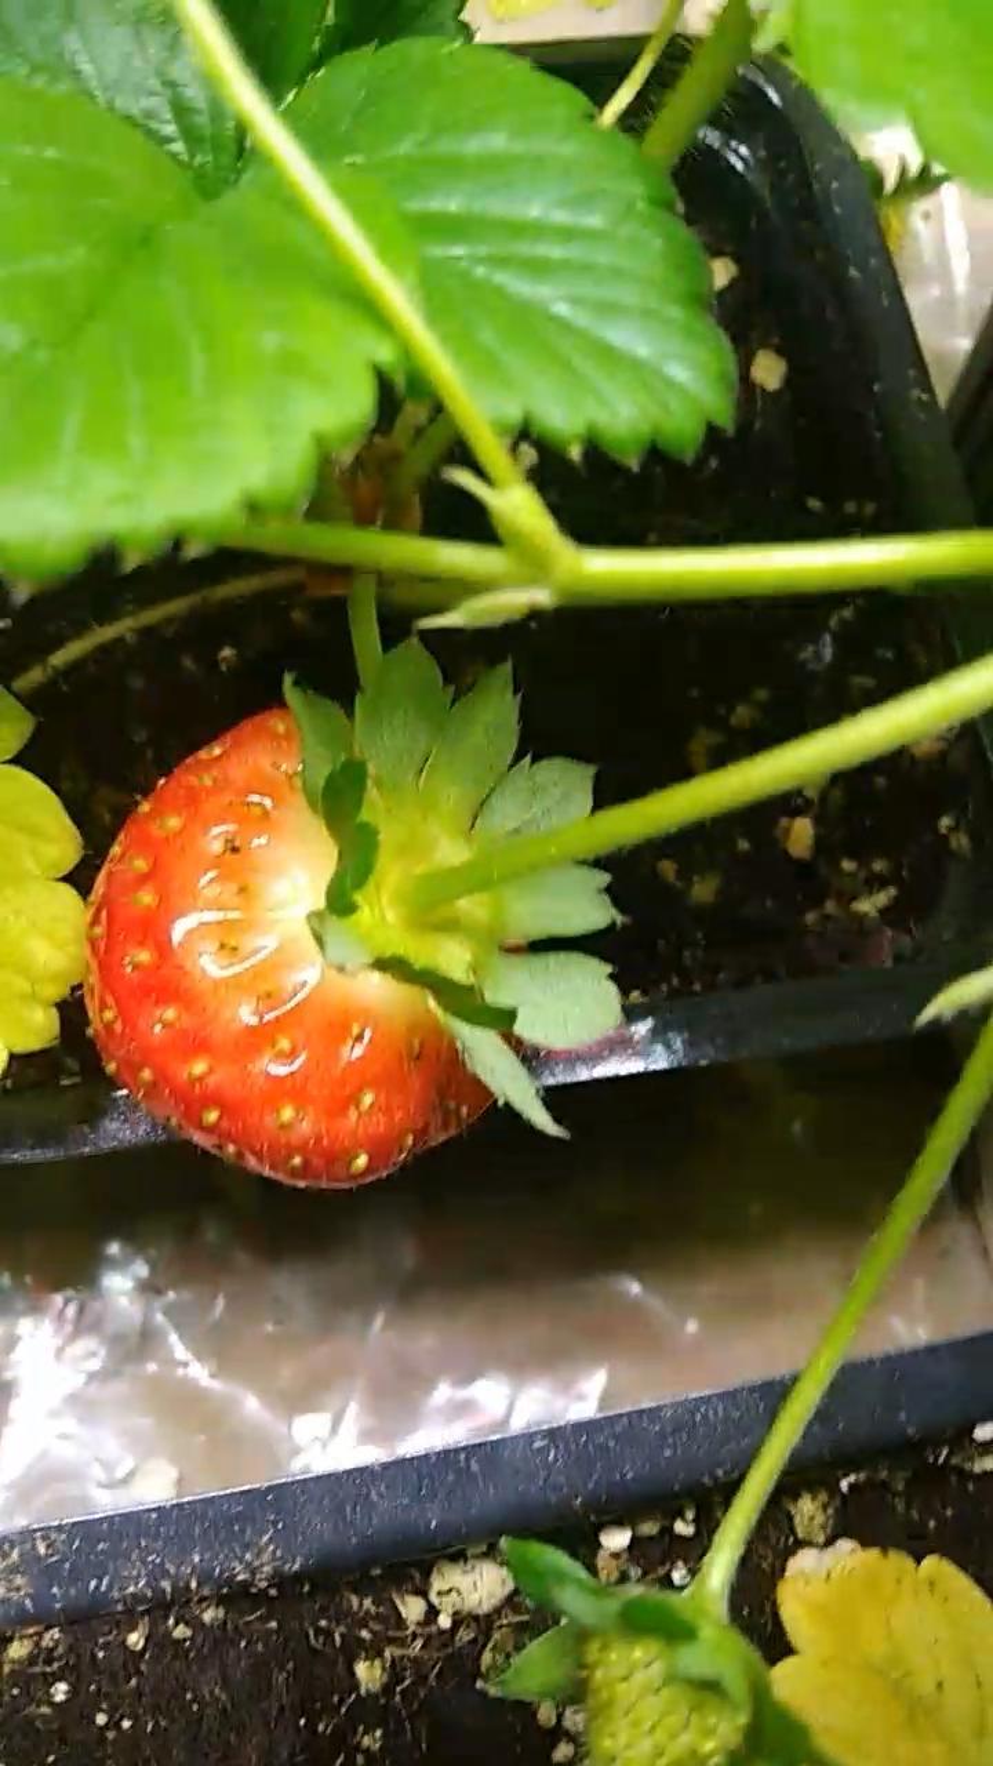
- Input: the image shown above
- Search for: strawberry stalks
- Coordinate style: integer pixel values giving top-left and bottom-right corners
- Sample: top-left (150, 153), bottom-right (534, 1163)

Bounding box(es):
top-left (248, 626), bottom-right (988, 1004)
top-left (688, 1245), bottom-right (907, 1608)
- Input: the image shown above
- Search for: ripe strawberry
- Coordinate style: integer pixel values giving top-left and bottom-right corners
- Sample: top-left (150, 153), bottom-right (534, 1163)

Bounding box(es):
top-left (74, 699), bottom-right (477, 1194)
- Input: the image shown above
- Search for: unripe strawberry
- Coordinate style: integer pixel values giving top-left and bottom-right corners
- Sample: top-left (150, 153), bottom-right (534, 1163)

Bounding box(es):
top-left (530, 1574), bottom-right (783, 1766)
